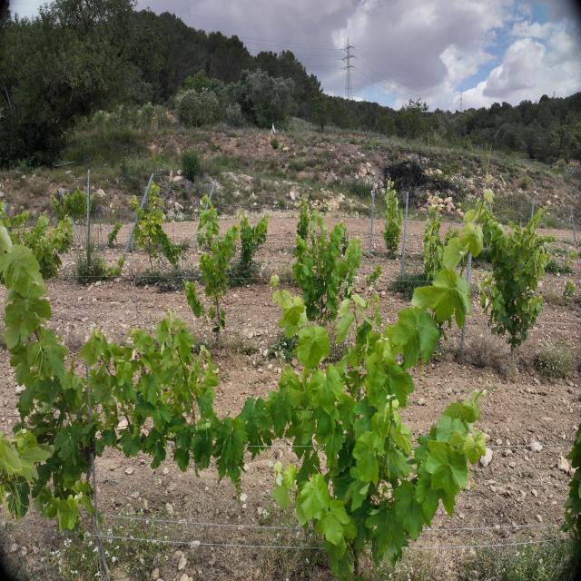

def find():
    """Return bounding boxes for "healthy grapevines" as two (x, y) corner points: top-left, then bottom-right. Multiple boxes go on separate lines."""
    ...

(0, 236), (213, 581)
(213, 212), (491, 581)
